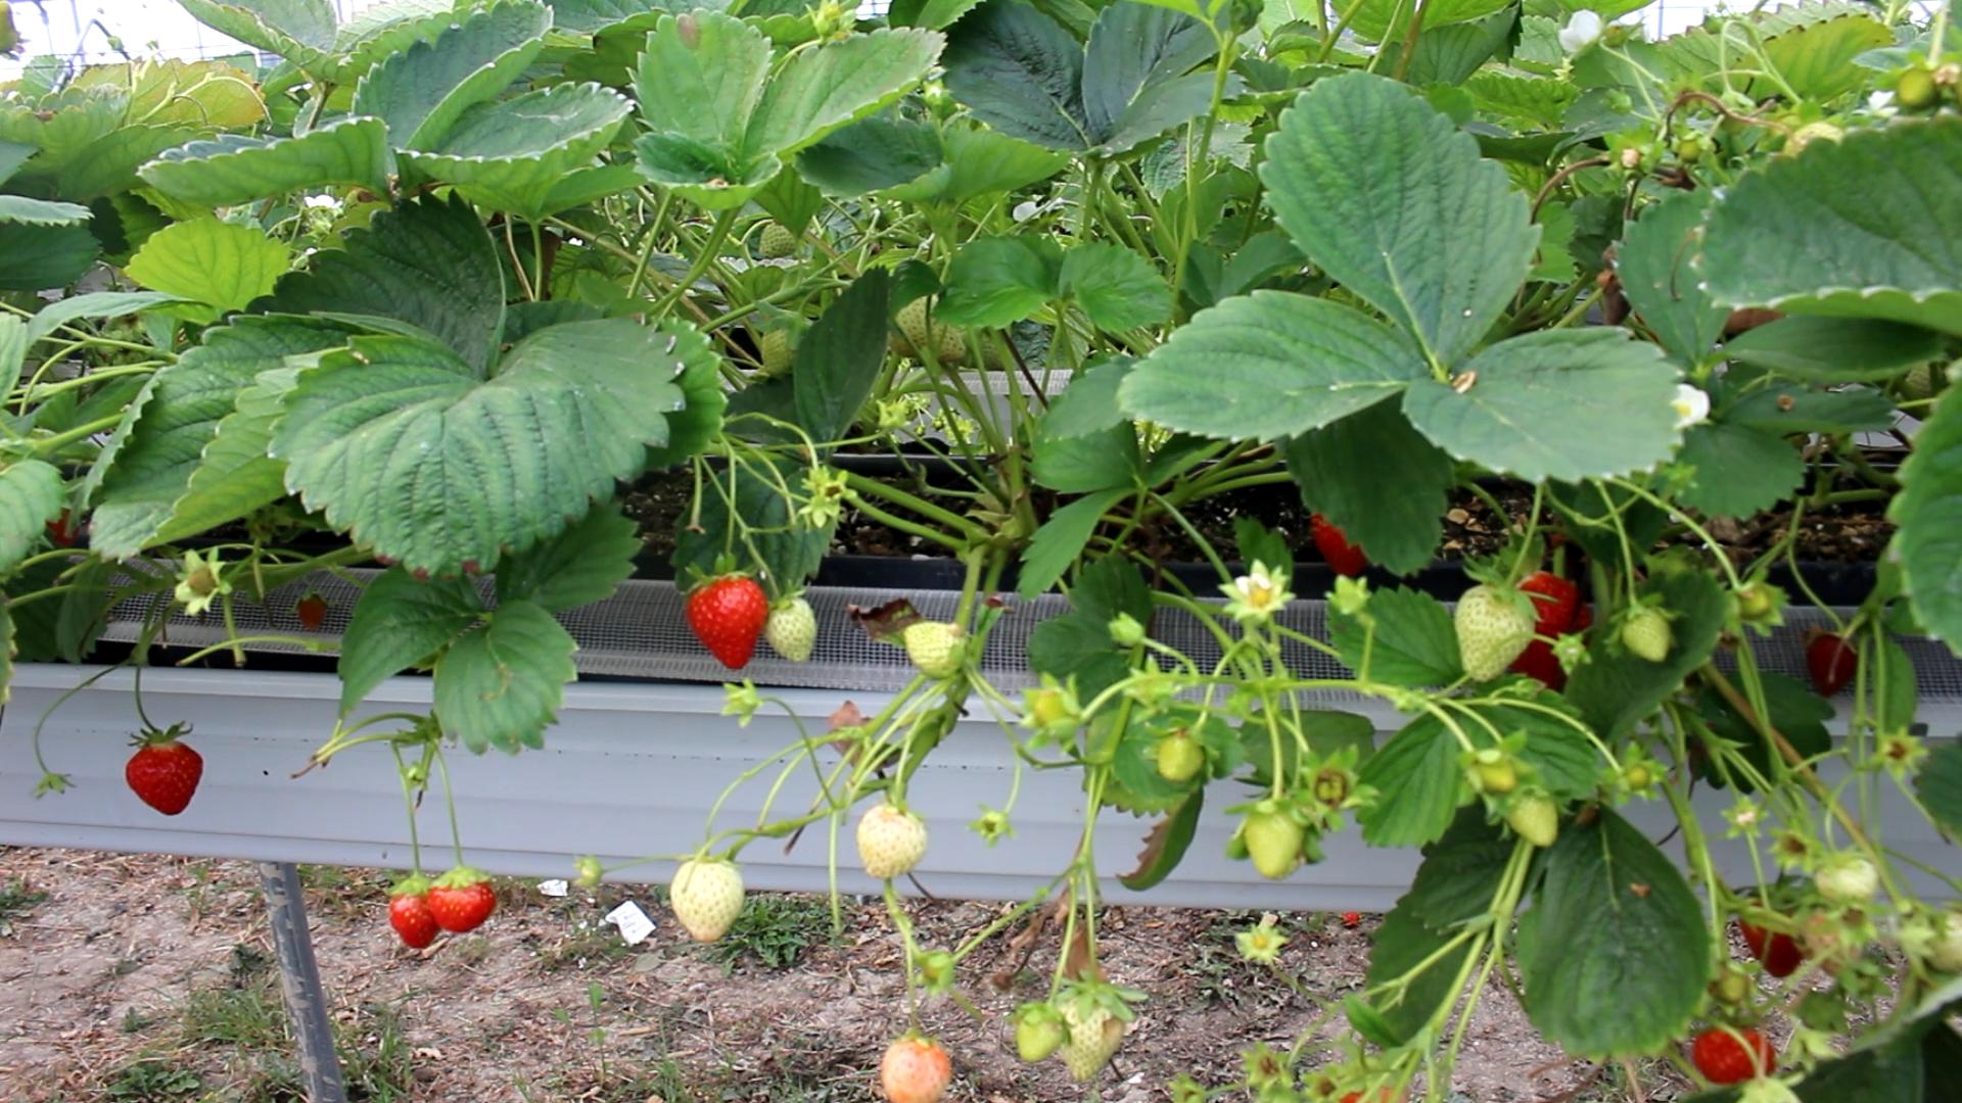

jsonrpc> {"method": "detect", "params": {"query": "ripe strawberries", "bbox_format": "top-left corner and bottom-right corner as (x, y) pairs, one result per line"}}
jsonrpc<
(674, 580), (786, 666)
(96, 750), (221, 823)
(436, 867), (517, 932)
(382, 877), (452, 961)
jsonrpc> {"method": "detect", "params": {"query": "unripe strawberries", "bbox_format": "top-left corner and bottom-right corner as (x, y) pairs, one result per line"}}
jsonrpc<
(850, 809), (938, 890)
(890, 602), (973, 686)
(862, 1018), (965, 1103)
(1223, 804), (1329, 888)
(736, 587), (860, 690)
(1049, 989), (1132, 1087)
(637, 854), (753, 957)
(1453, 585), (1546, 679)
(1154, 733), (1224, 793)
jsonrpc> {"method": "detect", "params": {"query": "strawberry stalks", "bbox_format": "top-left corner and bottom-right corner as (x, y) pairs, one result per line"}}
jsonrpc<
(430, 733), (478, 895)
(129, 635), (169, 775)
(384, 745), (430, 920)
(701, 454), (759, 598)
